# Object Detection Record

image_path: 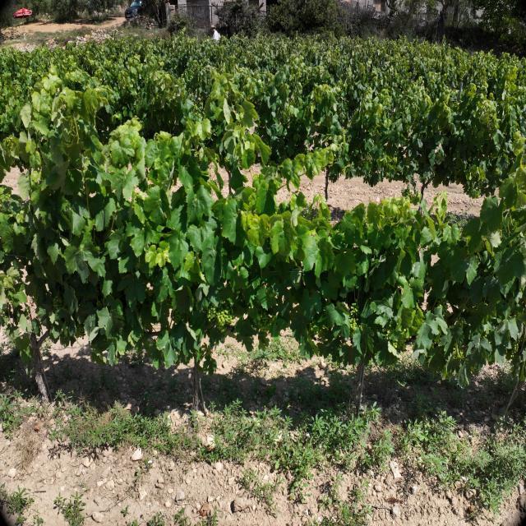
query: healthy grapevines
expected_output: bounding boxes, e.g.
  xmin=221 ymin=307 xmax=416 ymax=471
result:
xmin=454 ymin=160 xmax=526 ymax=442
xmin=0 ymin=79 xmax=108 ymax=429
xmin=109 ymin=104 xmax=307 ymax=431
xmin=302 ymin=191 xmax=457 ymax=434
